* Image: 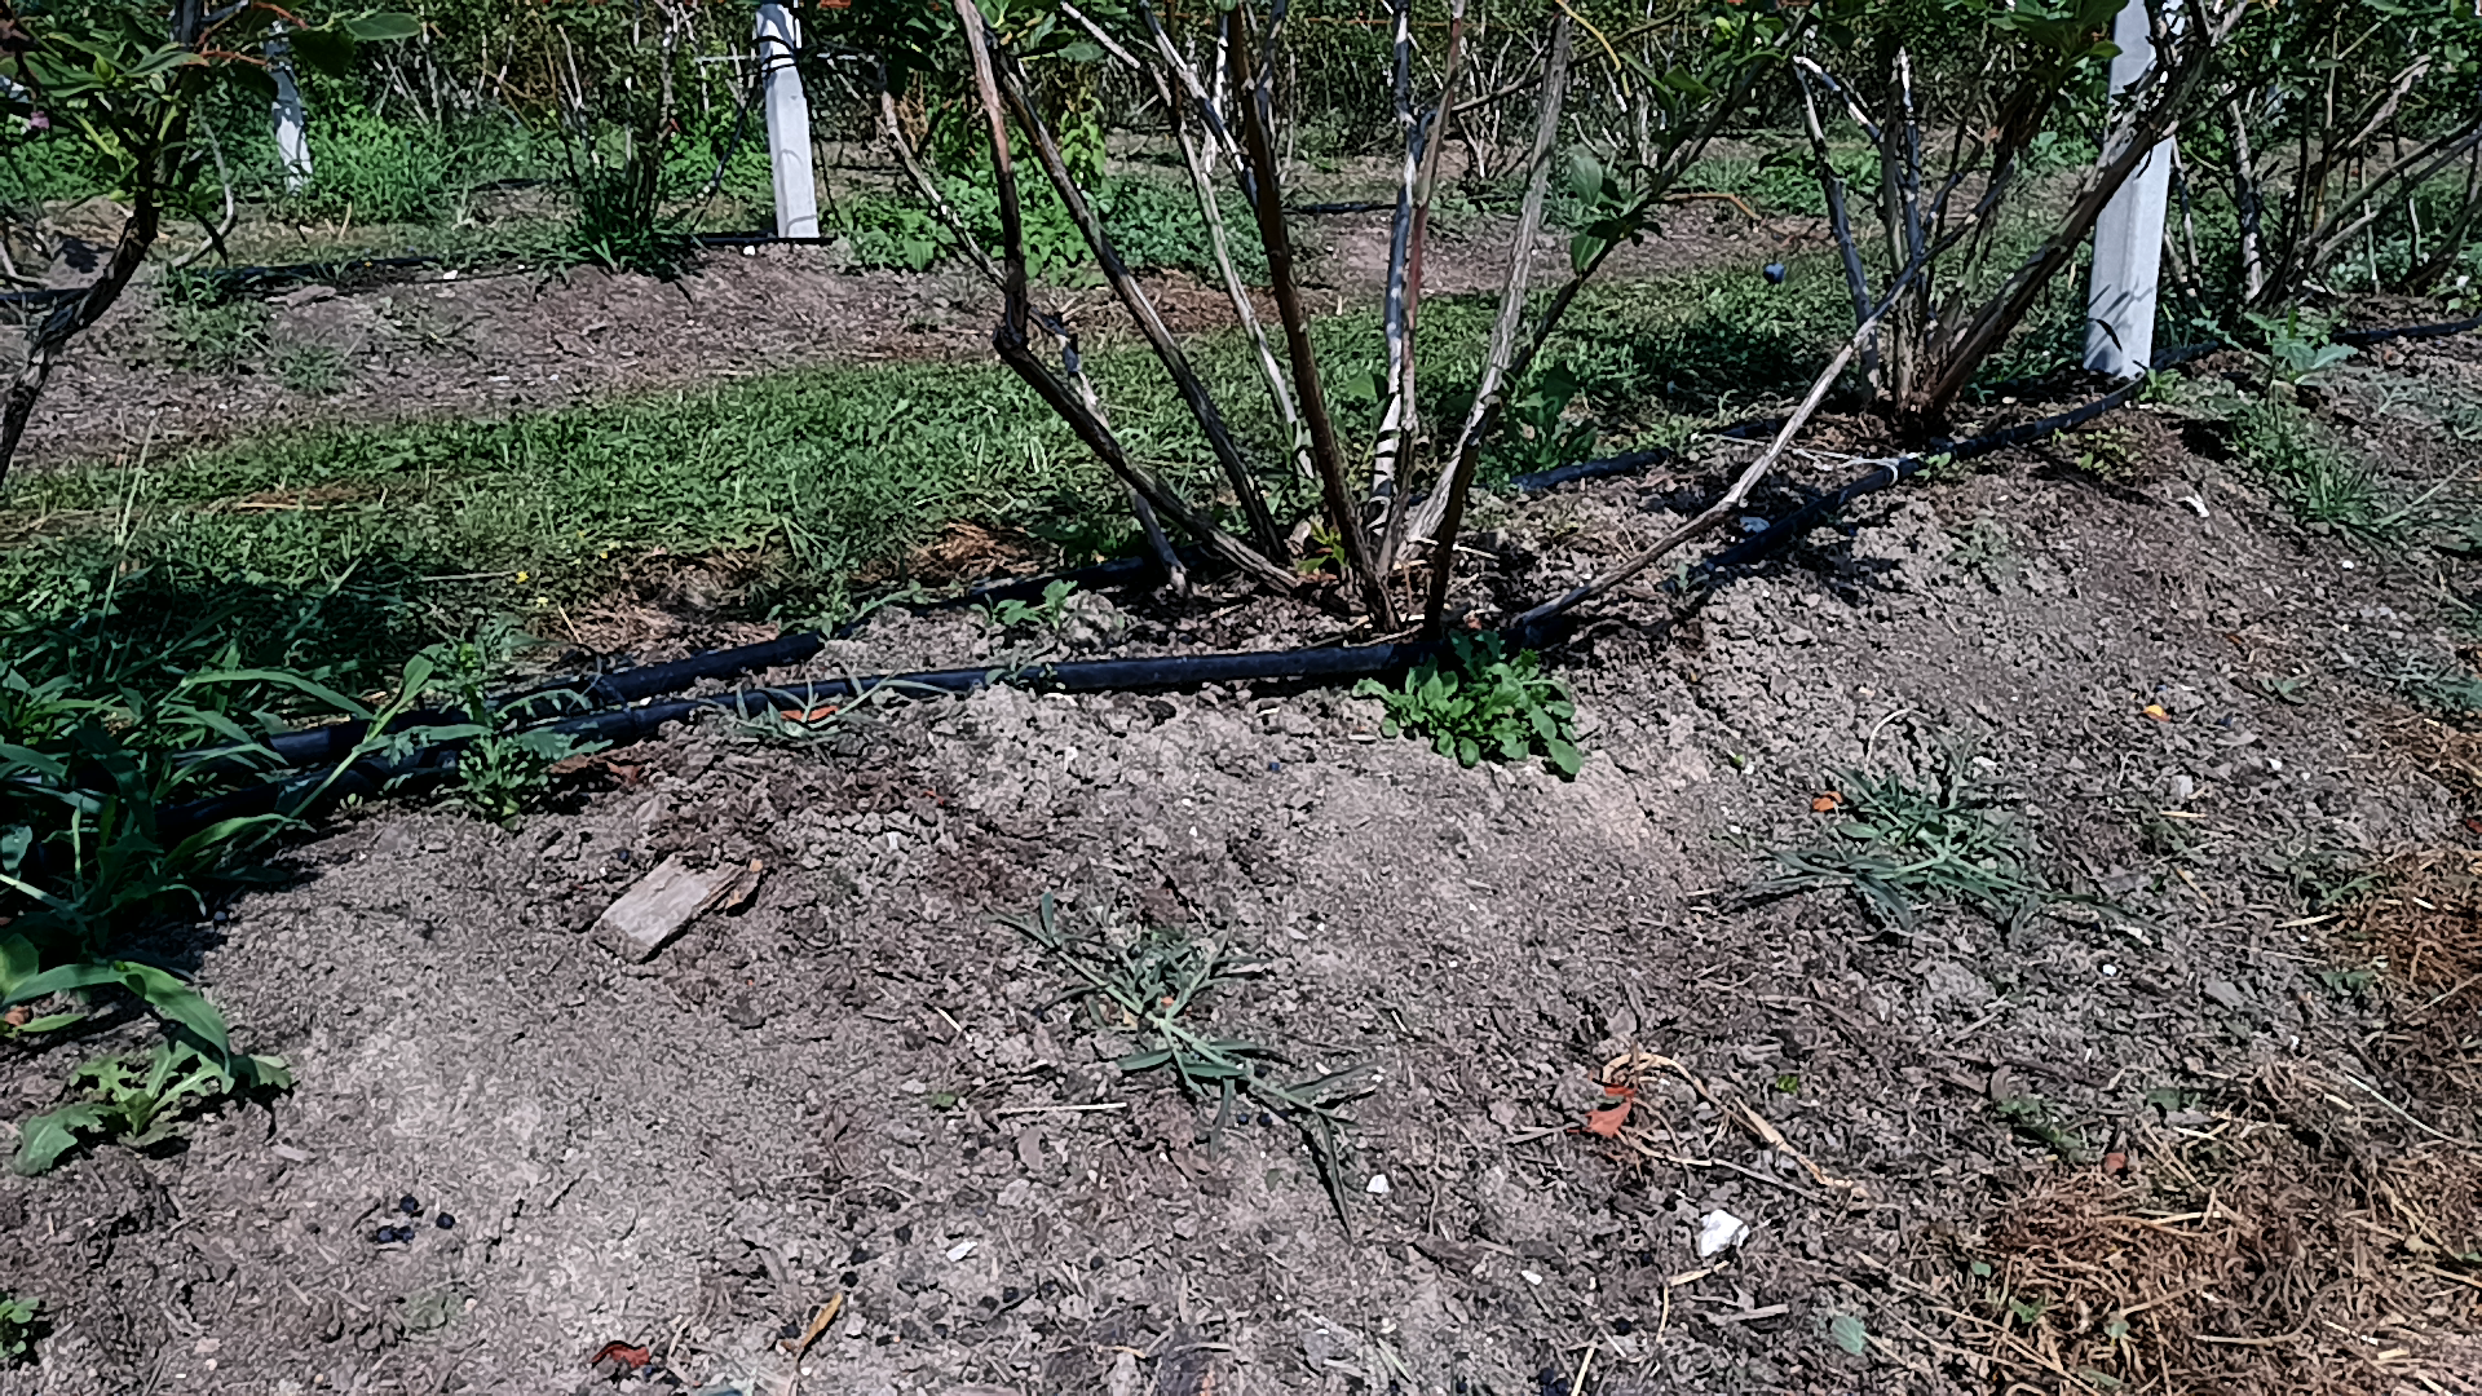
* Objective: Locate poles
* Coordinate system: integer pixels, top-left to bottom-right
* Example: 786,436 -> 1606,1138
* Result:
756,27 -> 821,246
2075,14 -> 2189,372
269,63 -> 312,185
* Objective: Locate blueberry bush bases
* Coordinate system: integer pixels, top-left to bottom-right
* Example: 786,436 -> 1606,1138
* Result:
1799,220 -> 2059,487
543,156 -> 703,278
1043,352 -> 1589,717
1417,147 -> 1525,230
2180,174 -> 2437,374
